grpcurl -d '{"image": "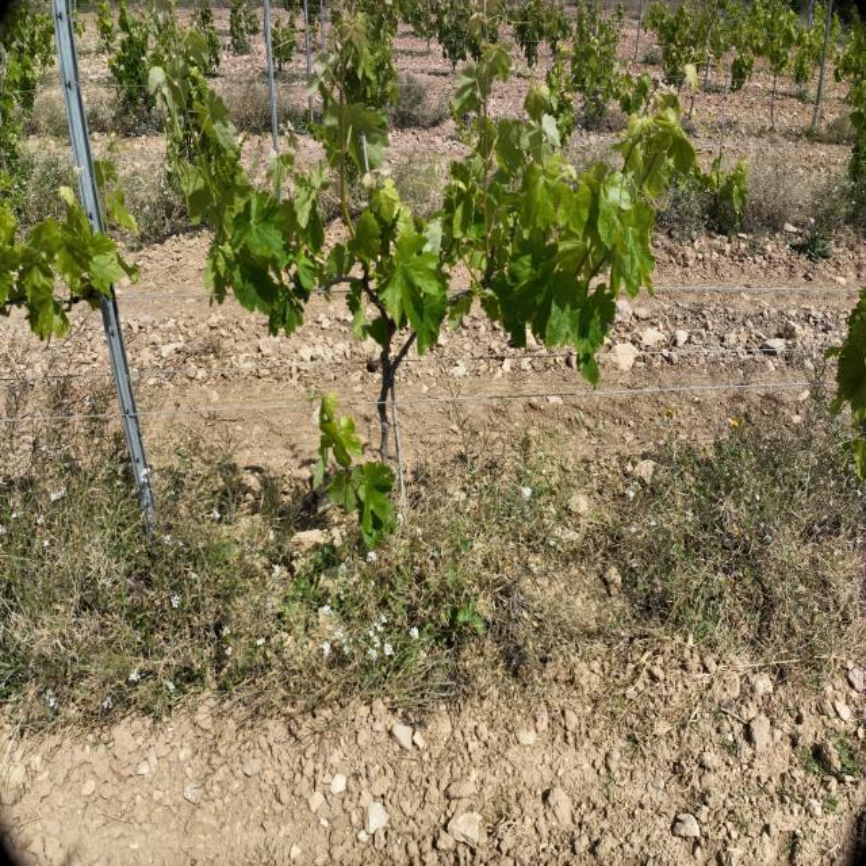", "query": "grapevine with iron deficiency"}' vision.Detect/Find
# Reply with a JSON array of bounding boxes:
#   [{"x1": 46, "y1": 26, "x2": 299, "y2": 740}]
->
[{"x1": 145, "y1": 11, "x2": 710, "y2": 529}]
